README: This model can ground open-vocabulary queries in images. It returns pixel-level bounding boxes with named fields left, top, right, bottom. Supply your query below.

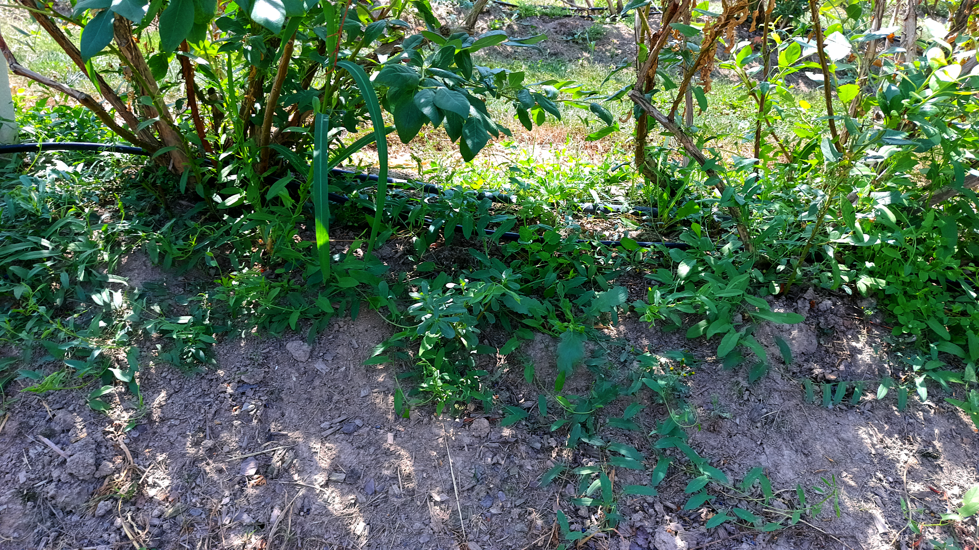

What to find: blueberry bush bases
left=88, top=79, right=320, bottom=253
left=628, top=91, right=965, bottom=338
